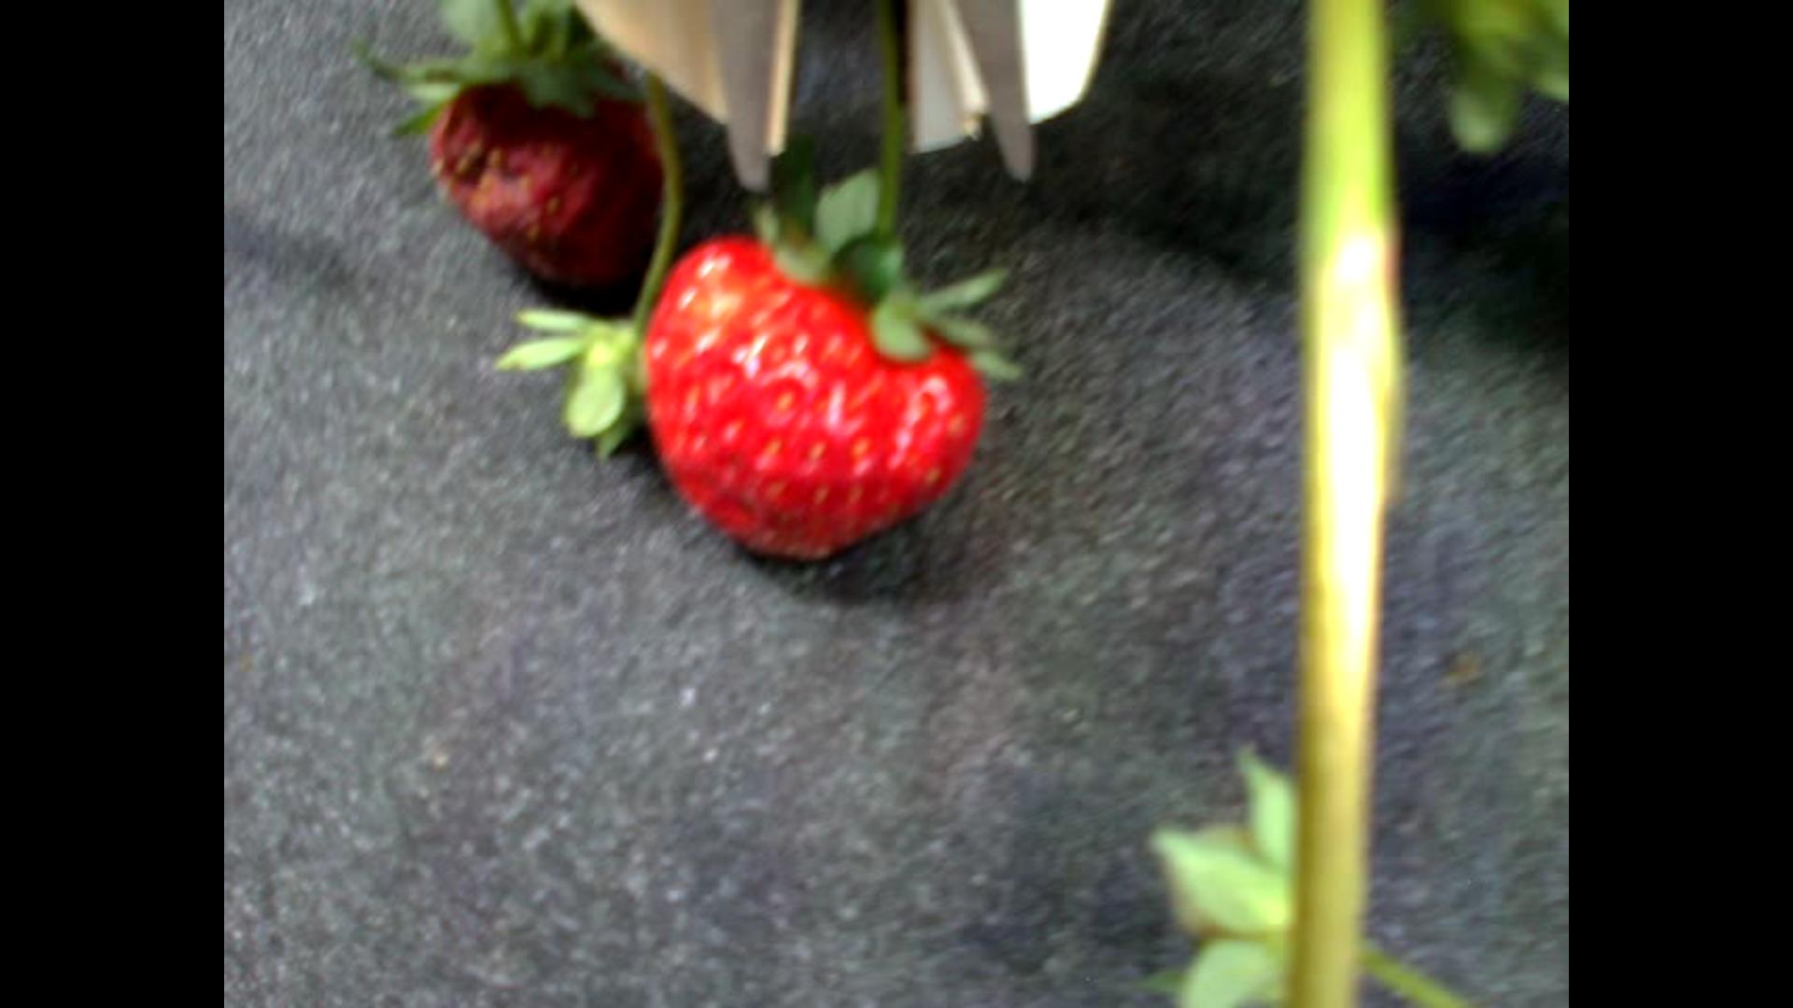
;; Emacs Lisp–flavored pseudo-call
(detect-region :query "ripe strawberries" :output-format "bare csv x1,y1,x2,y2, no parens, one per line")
442,33,713,299
631,224,1027,549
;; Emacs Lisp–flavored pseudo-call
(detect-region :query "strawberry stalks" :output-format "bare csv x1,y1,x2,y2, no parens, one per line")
1239,830,1483,1008
481,6,547,91
862,0,934,329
